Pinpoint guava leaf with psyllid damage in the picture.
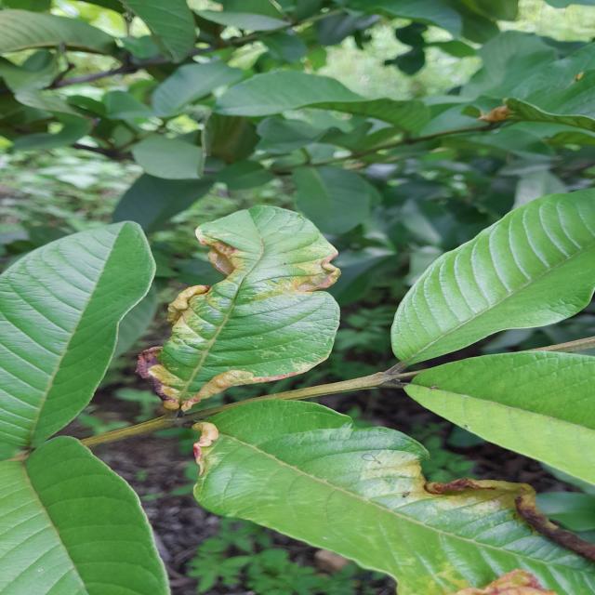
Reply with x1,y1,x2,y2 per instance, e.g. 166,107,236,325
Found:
123,200,366,424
